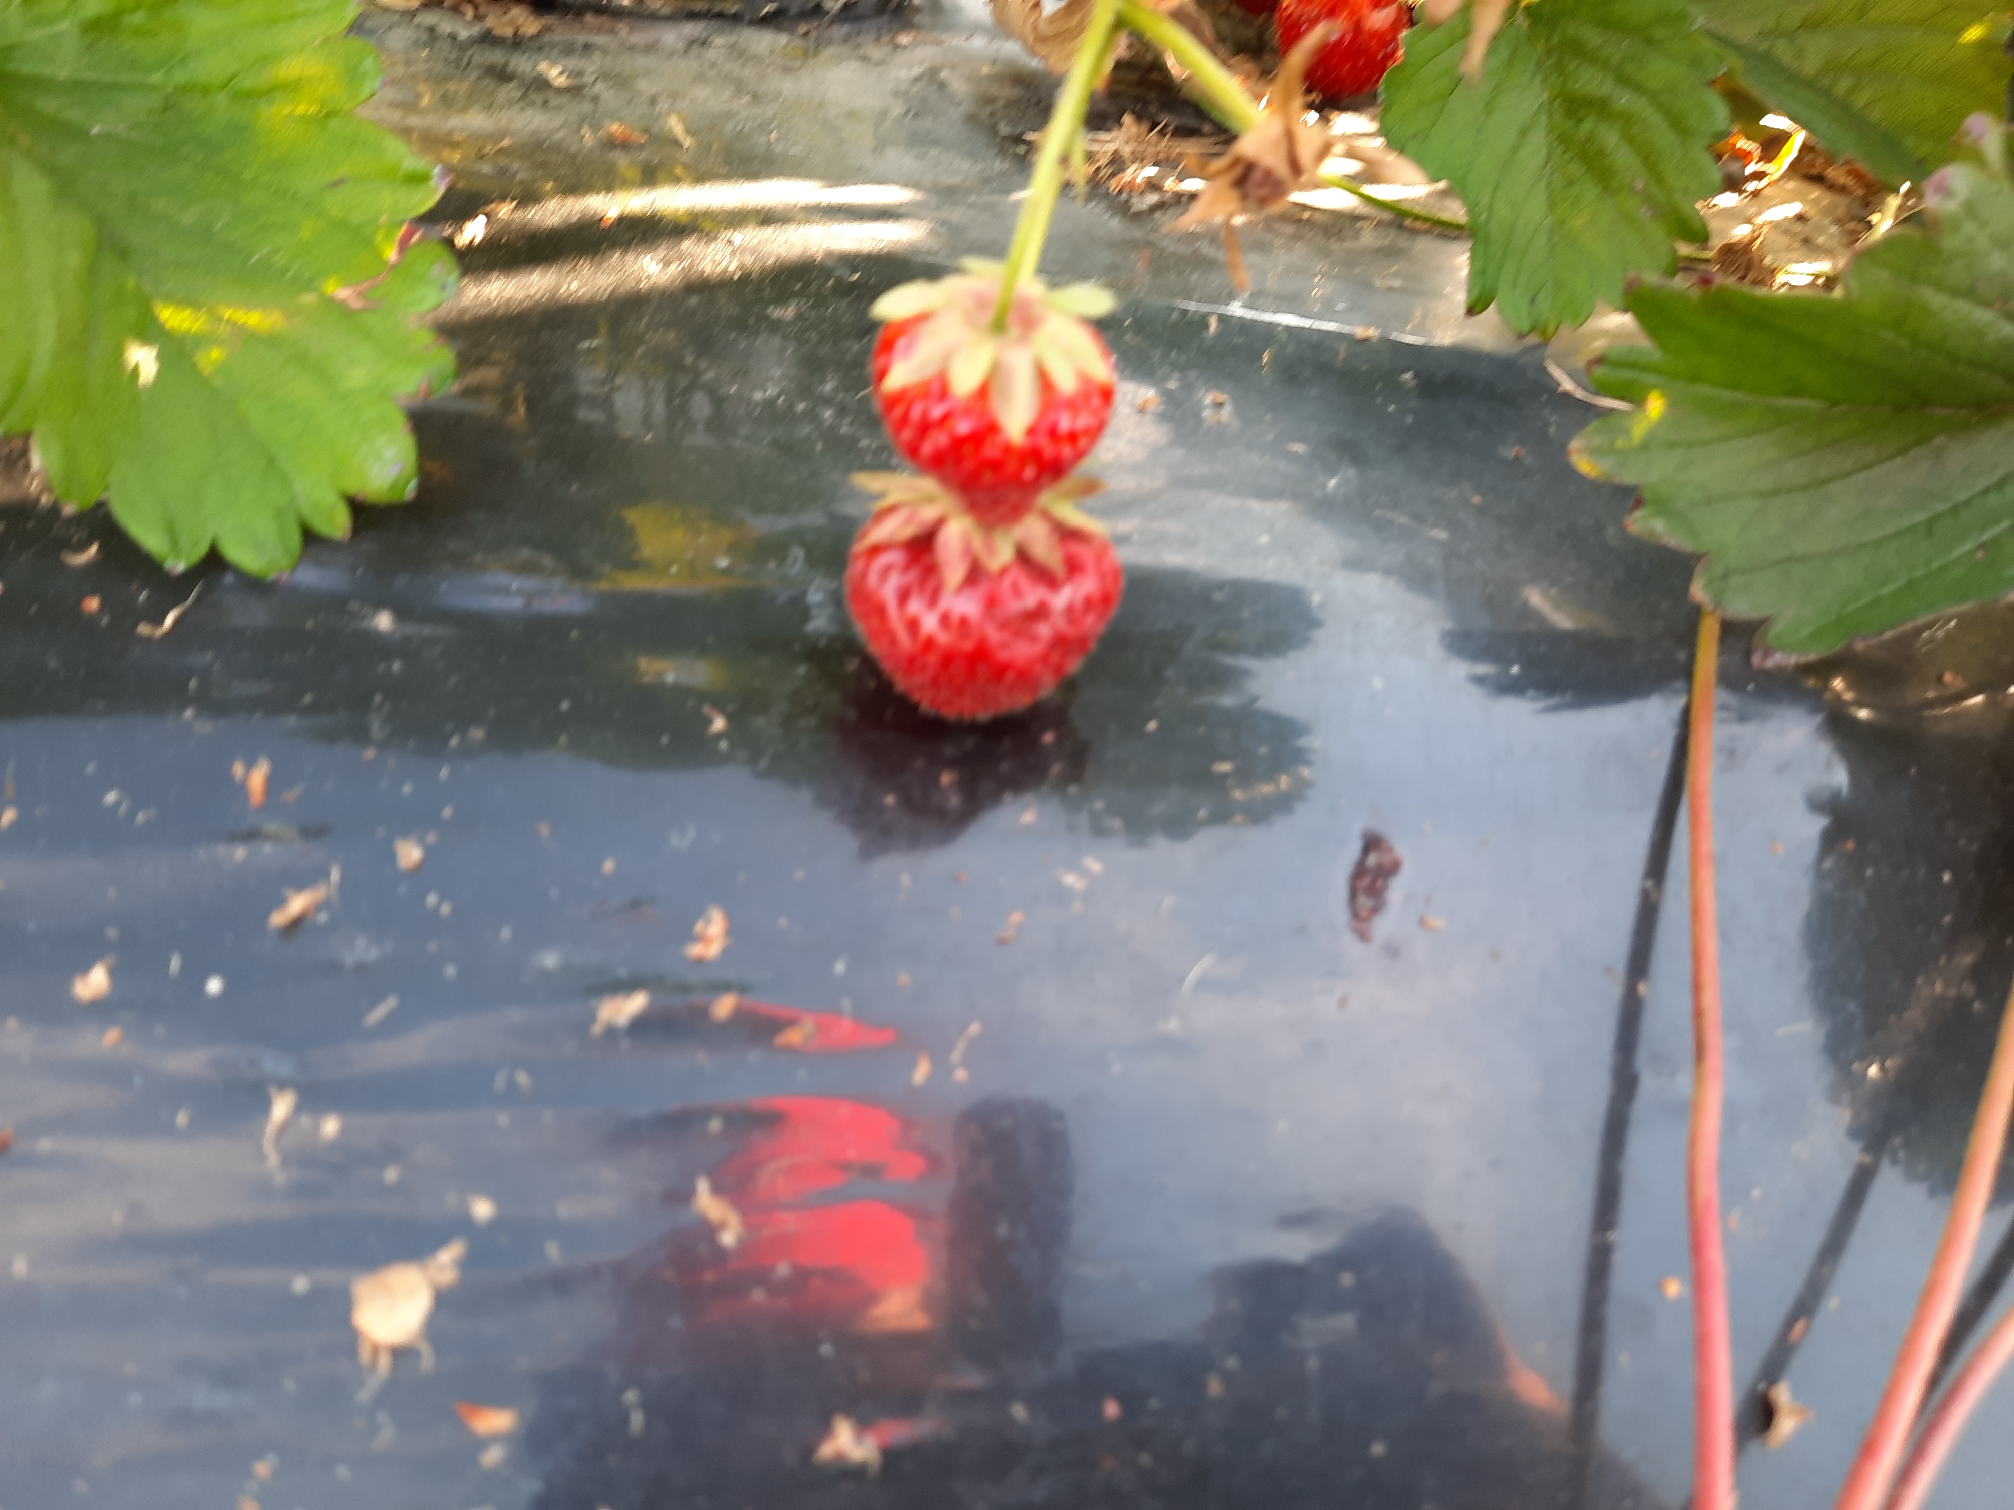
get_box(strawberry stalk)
[970,20,1113,358]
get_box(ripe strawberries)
[1274,0,1412,100]
[875,306,1126,484]
[853,484,1133,740]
